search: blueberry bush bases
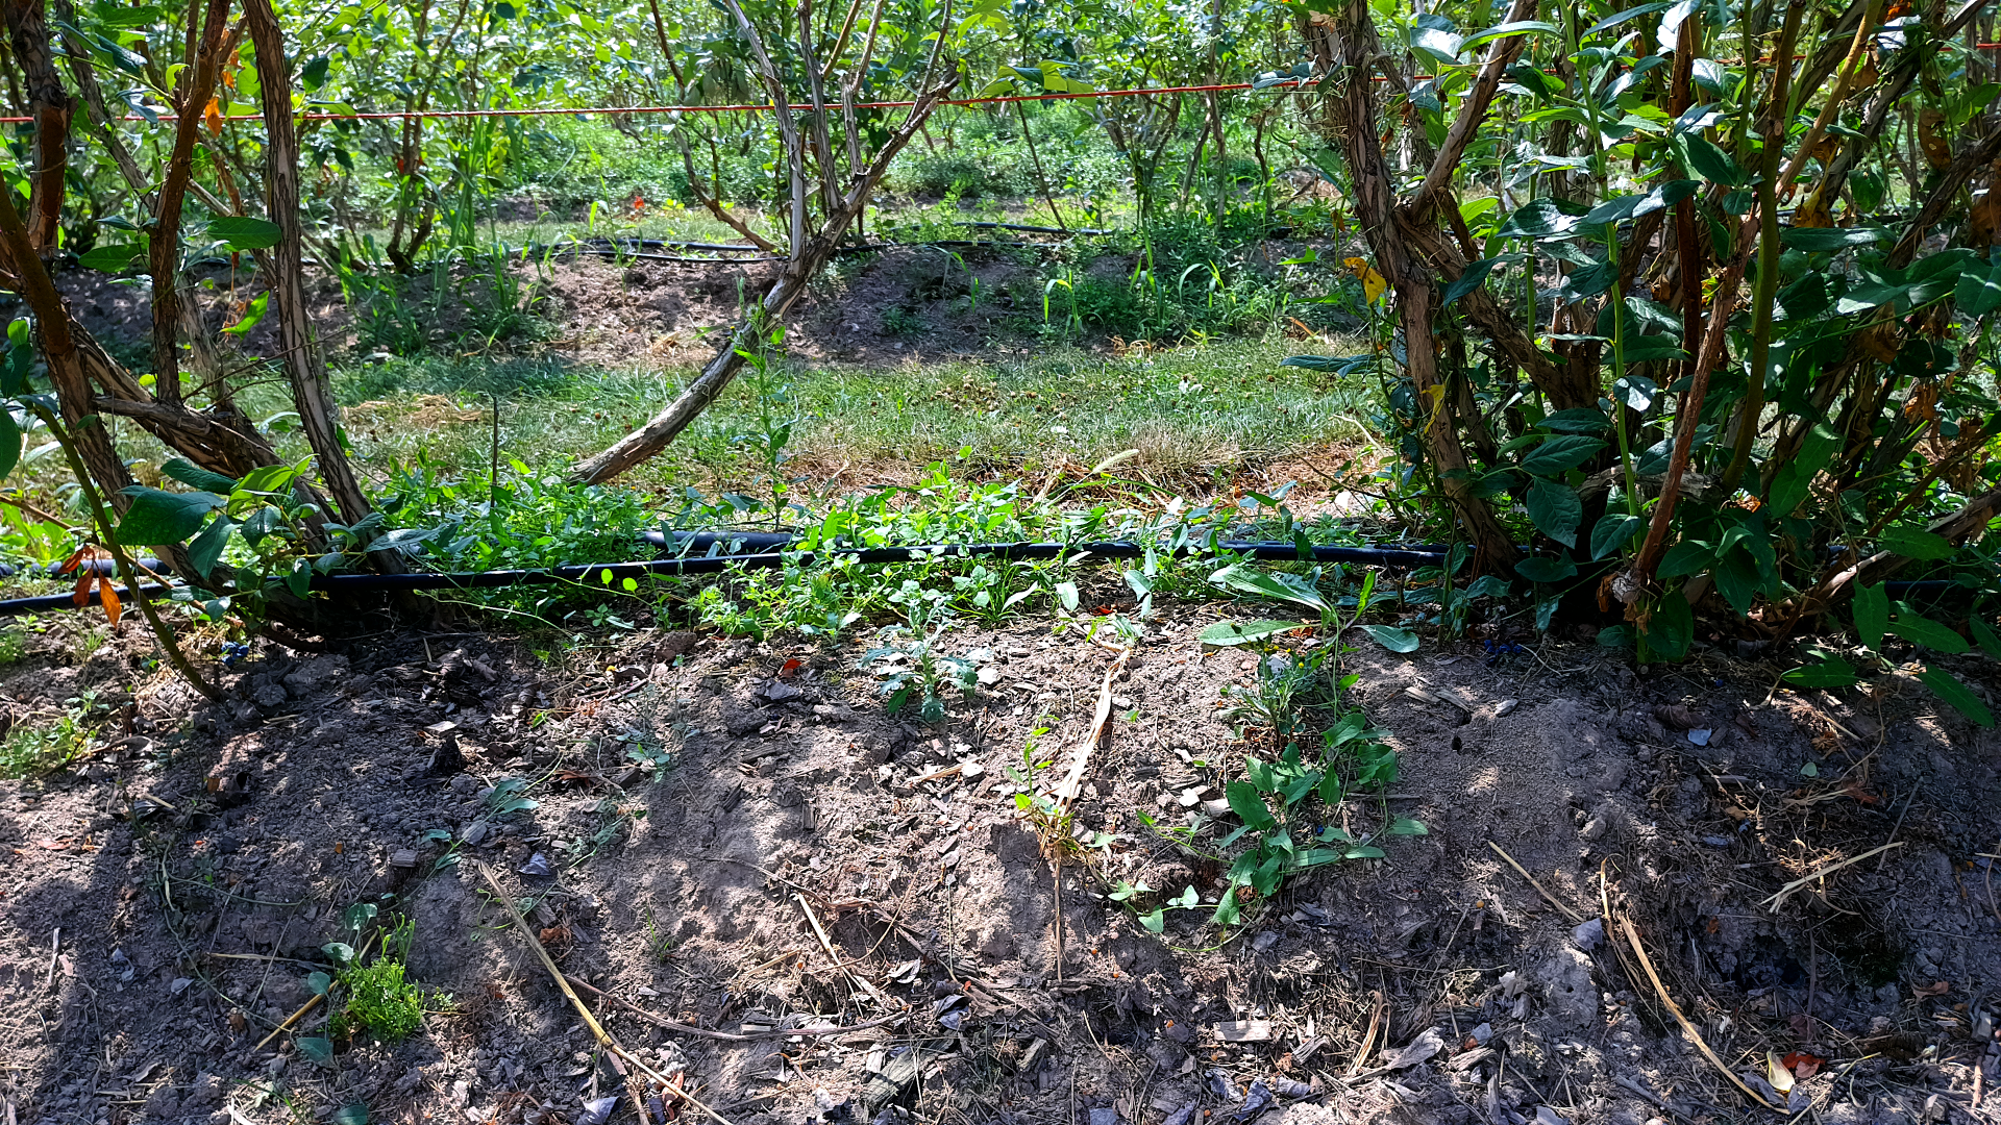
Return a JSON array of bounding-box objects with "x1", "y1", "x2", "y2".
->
[
  {"x1": 1096, "y1": 163, "x2": 1292, "y2": 277},
  {"x1": 307, "y1": 215, "x2": 461, "y2": 314},
  {"x1": 31, "y1": 373, "x2": 640, "y2": 710},
  {"x1": 678, "y1": 160, "x2": 922, "y2": 314},
  {"x1": 1367, "y1": 313, "x2": 1998, "y2": 729}
]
